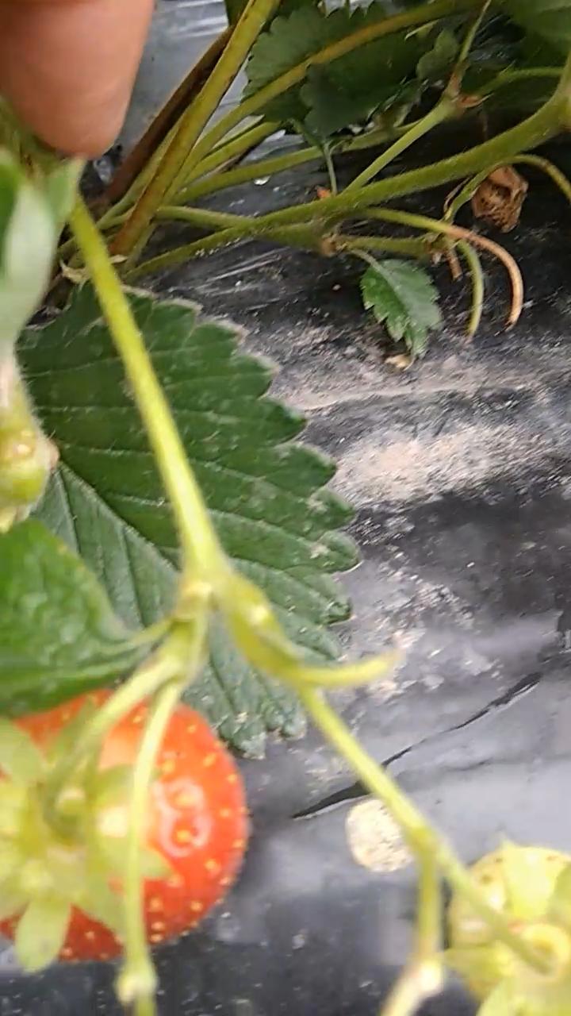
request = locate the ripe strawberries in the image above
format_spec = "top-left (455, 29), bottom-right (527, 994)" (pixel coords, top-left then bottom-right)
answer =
top-left (5, 691), bottom-right (259, 961)
top-left (443, 840), bottom-right (571, 977)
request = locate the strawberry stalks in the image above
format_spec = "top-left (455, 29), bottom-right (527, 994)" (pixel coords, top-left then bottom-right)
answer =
top-left (361, 771), bottom-right (533, 953)
top-left (21, 631), bottom-right (219, 863)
